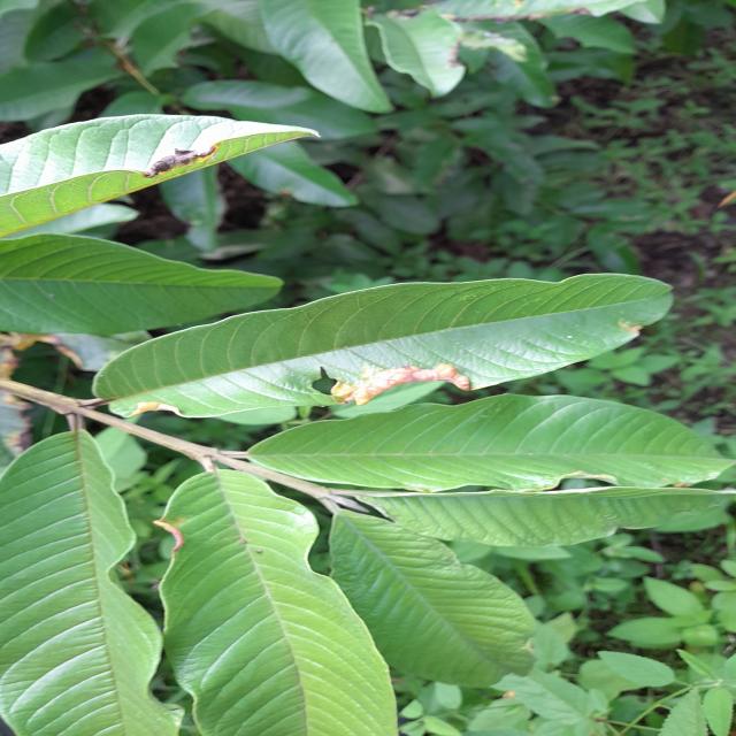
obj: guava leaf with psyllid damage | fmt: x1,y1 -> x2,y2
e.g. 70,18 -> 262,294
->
85,263 -> 685,433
